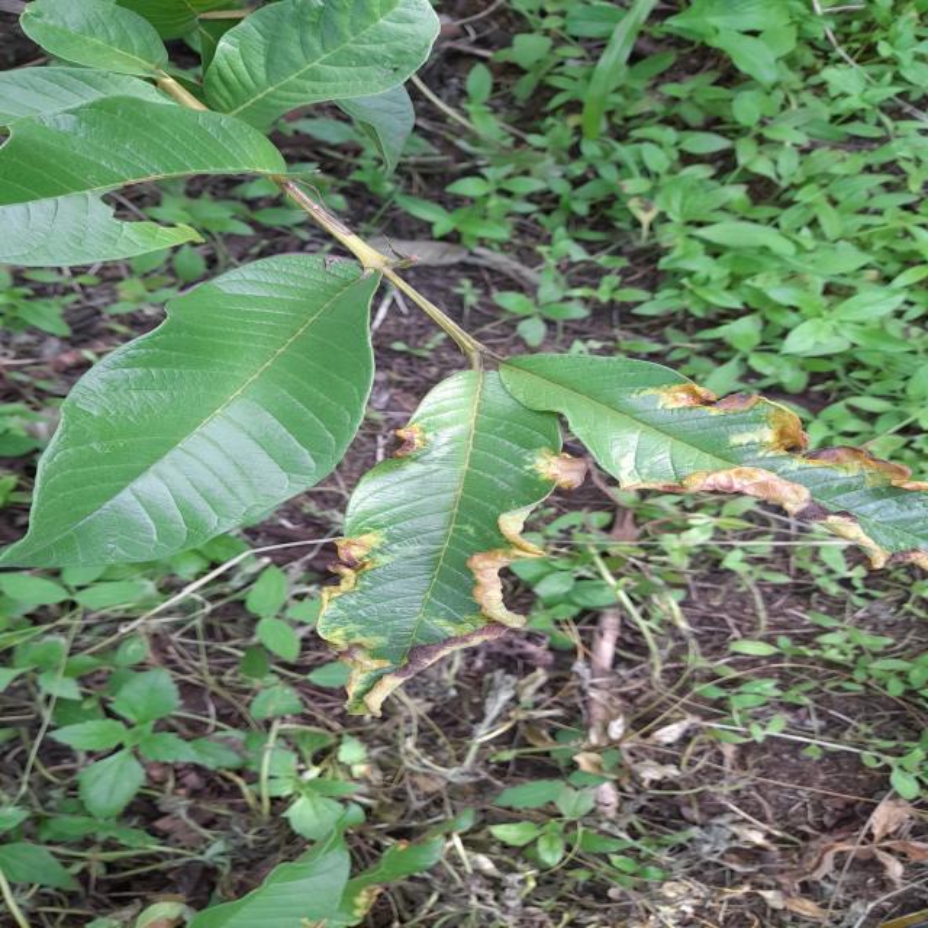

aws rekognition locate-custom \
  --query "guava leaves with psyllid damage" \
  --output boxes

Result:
[500,325,928,592]
[323,352,571,730]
